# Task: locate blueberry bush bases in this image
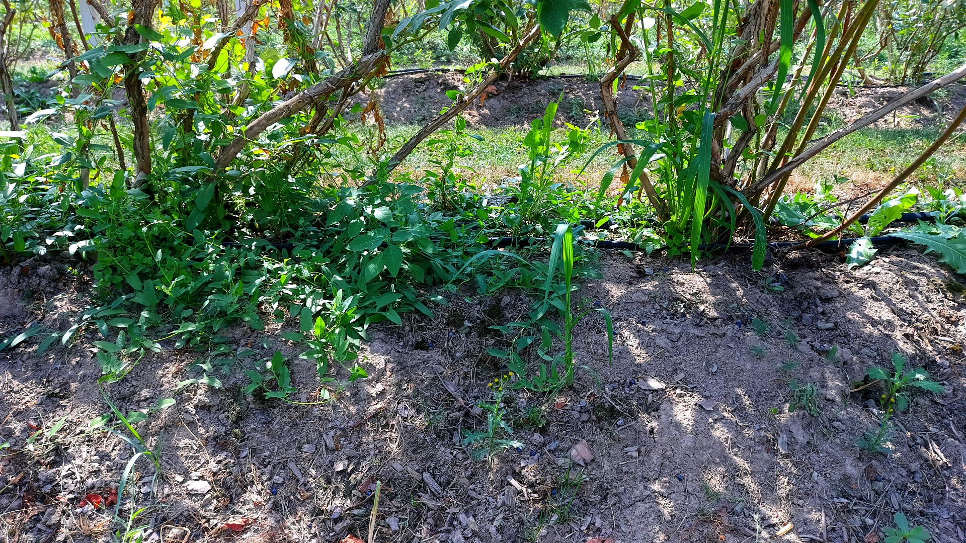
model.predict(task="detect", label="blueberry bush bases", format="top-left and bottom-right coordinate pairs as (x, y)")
top-left (610, 128), bottom-right (887, 295)
top-left (477, 48), bottom-right (556, 97)
top-left (94, 98), bottom-right (348, 295)
top-left (861, 47), bottom-right (937, 97)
